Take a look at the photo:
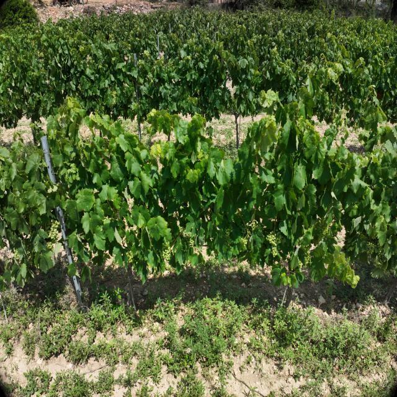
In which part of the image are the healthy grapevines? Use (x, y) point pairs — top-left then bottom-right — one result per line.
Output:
(0, 102), (213, 331)
(215, 110), (397, 325)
